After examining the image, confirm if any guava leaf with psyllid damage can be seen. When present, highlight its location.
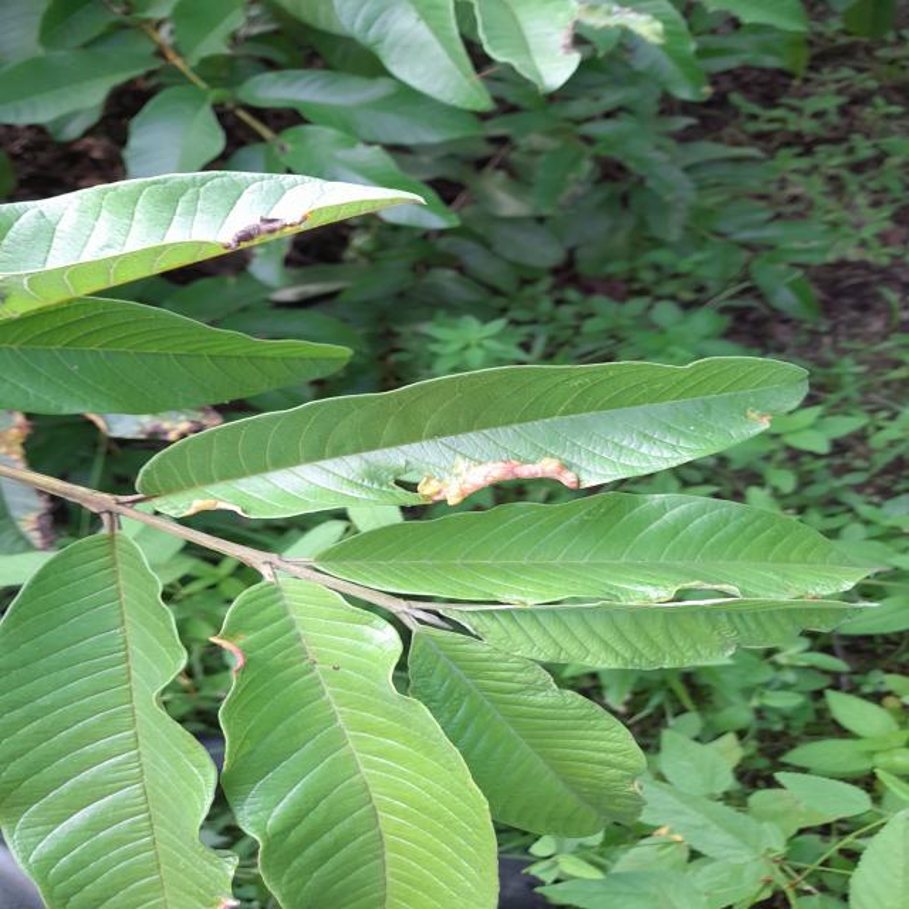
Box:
[126,318,824,540]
